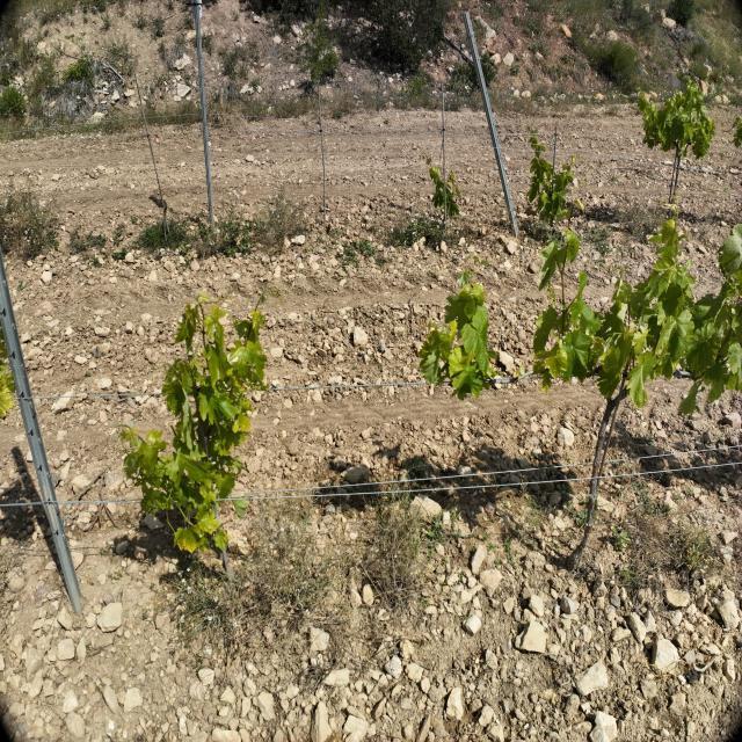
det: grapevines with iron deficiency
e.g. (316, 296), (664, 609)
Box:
(112, 283), (277, 592)
(412, 197), (742, 566)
